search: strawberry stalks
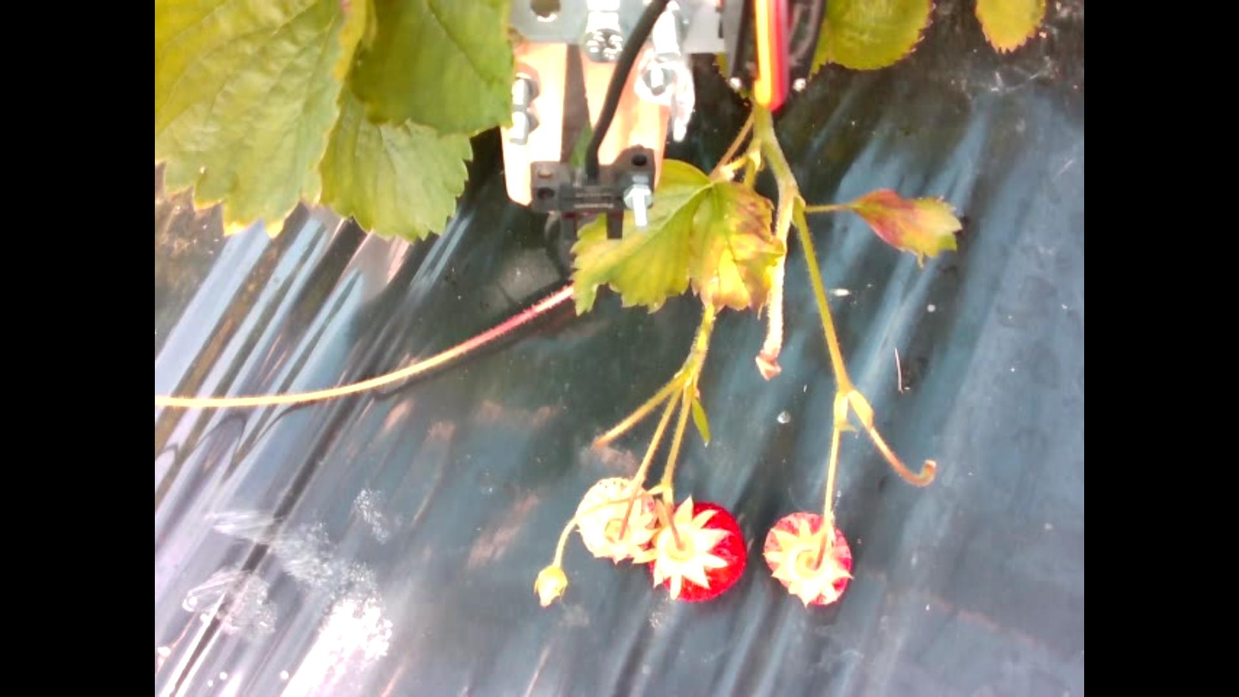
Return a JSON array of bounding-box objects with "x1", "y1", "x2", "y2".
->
[
  {"x1": 660, "y1": 505, "x2": 695, "y2": 561},
  {"x1": 801, "y1": 467, "x2": 835, "y2": 576},
  {"x1": 625, "y1": 452, "x2": 648, "y2": 515}
]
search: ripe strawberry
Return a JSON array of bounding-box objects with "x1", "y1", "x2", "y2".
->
[{"x1": 650, "y1": 491, "x2": 747, "y2": 608}]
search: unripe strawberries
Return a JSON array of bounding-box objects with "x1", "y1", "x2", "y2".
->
[
  {"x1": 570, "y1": 473, "x2": 655, "y2": 570},
  {"x1": 764, "y1": 504, "x2": 853, "y2": 606}
]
